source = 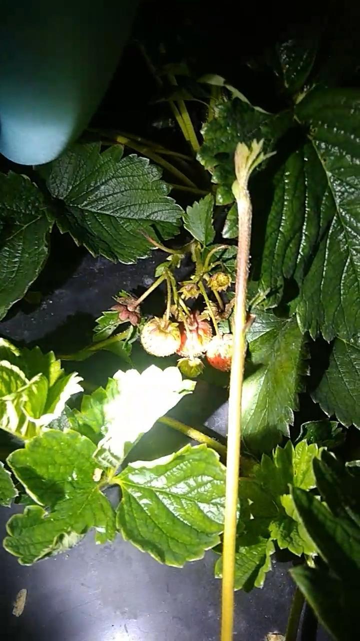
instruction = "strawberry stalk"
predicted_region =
[205,299,218,341]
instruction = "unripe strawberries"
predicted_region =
[140,316,179,358]
[179,357,206,380]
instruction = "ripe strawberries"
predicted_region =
[205,336,249,373]
[175,315,210,355]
